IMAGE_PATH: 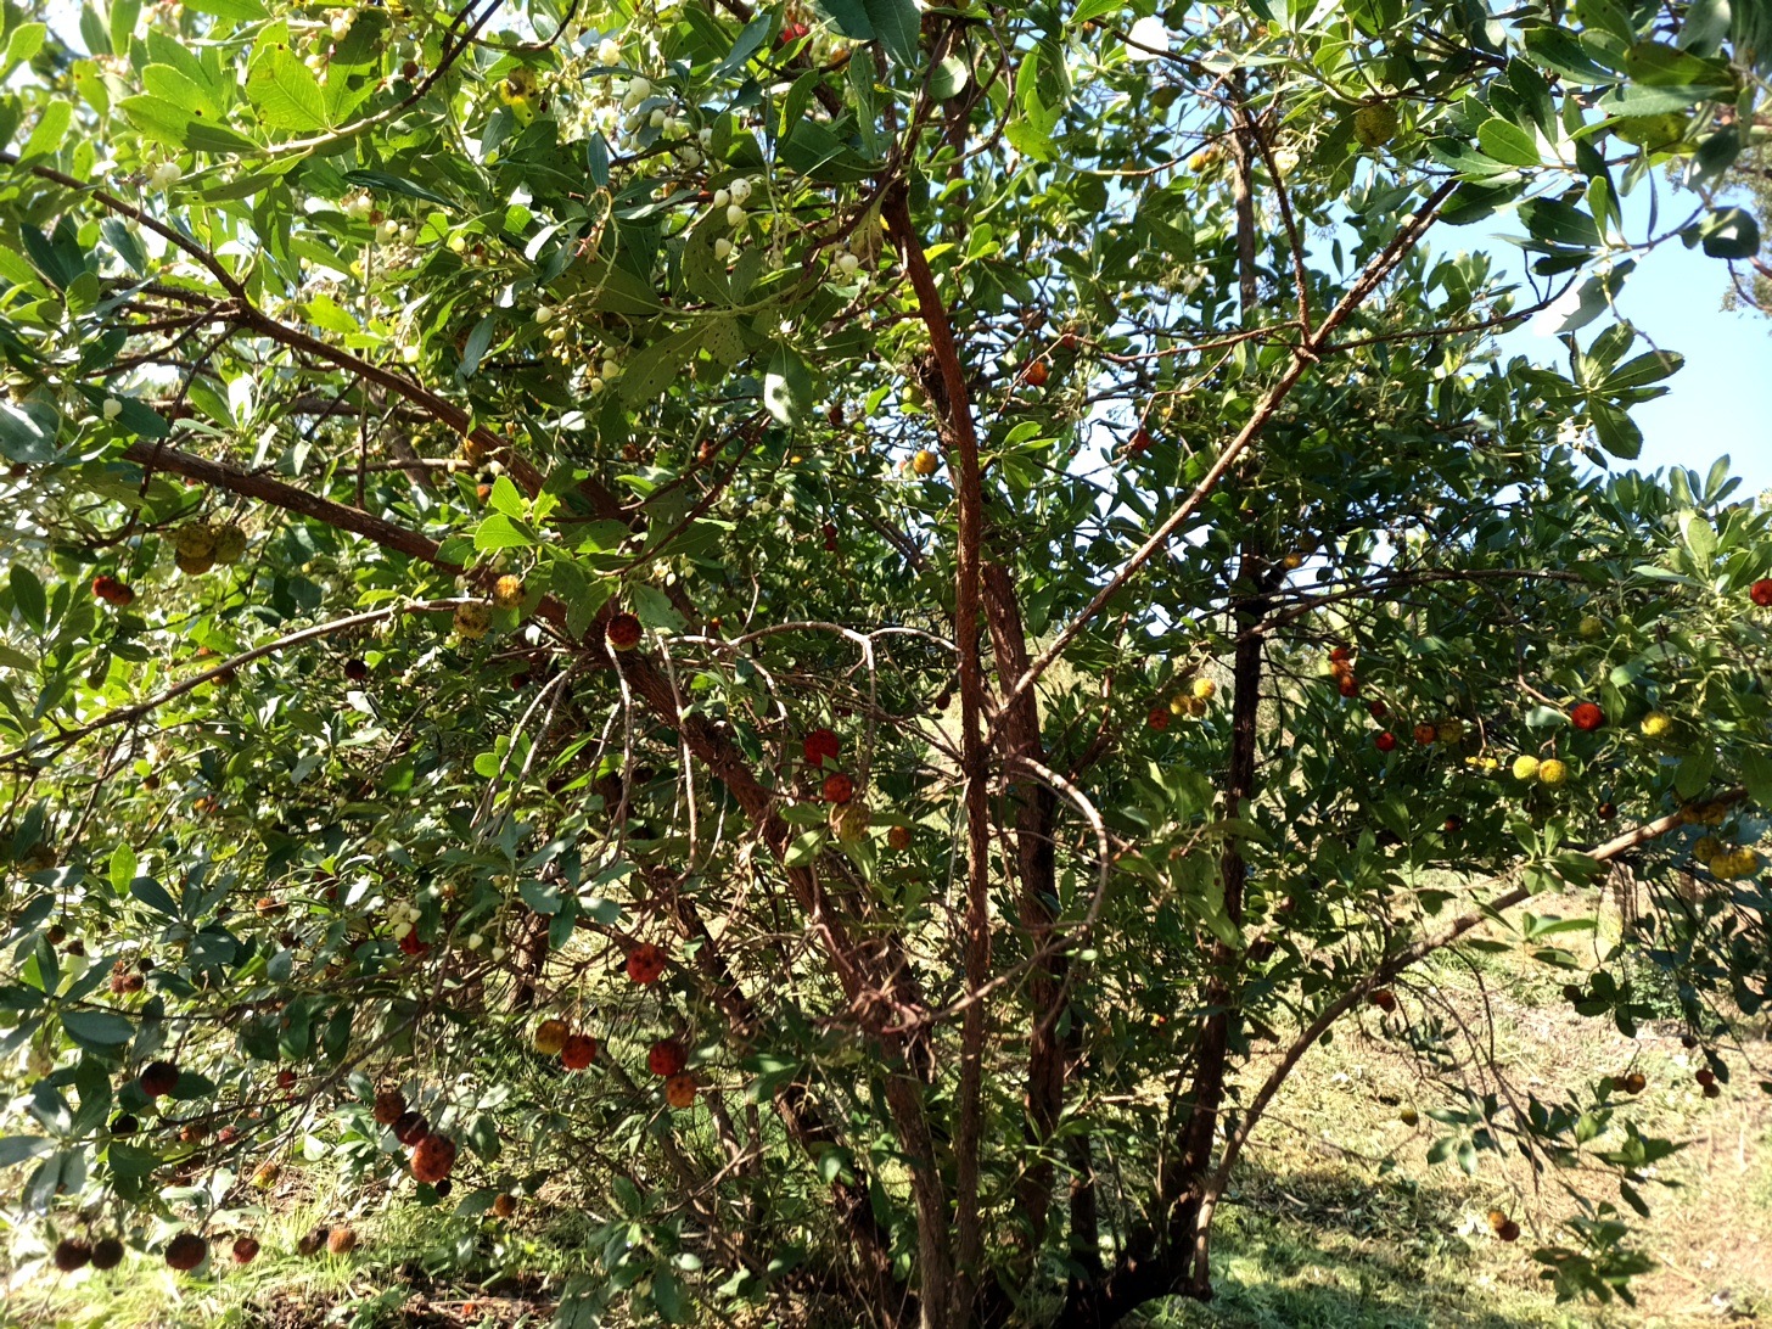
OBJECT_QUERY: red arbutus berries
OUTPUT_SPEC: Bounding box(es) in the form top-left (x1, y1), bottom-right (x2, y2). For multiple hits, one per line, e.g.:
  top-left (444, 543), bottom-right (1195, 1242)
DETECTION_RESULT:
top-left (824, 539), bottom-right (837, 550)
top-left (1146, 706), bottom-right (1170, 730)
top-left (91, 573), bottom-right (117, 597)
top-left (1381, 997), bottom-right (1395, 1011)
top-left (219, 1124), bottom-right (237, 1144)
top-left (1374, 731), bottom-right (1394, 750)
top-left (1327, 644), bottom-right (1350, 662)
top-left (233, 1237), bottom-right (259, 1262)
top-left (804, 730), bottom-right (839, 765)
top-left (626, 943), bottom-right (664, 987)
top-left (54, 1236), bottom-right (91, 1270)
top-left (277, 1069), bottom-right (296, 1088)
top-left (374, 1090), bottom-right (407, 1121)
top-left (111, 972), bottom-right (125, 993)
top-left (1126, 429), bottom-right (1151, 451)
top-left (562, 1035), bottom-right (596, 1071)
top-left (123, 976), bottom-right (143, 992)
top-left (1413, 722), bottom-right (1434, 745)
top-left (1573, 703), bottom-right (1602, 730)
top-left (1339, 674), bottom-right (1361, 697)
top-left (179, 1126), bottom-right (197, 1144)
top-left (1696, 1069), bottom-right (1714, 1084)
top-left (401, 925), bottom-right (429, 956)
top-left (824, 772), bottom-right (856, 803)
top-left (1022, 361), bottom-right (1047, 384)
top-left (646, 1039), bottom-right (684, 1073)
top-left (409, 1136), bottom-right (456, 1182)
top-left (113, 583), bottom-right (137, 605)
top-left (141, 1061), bottom-right (175, 1098)
top-left (47, 926), bottom-right (65, 943)
top-left (608, 612), bottom-right (642, 645)
top-left (395, 1112), bottom-right (428, 1144)
top-left (1750, 577), bottom-right (1772, 606)
top-left (1370, 700), bottom-right (1388, 716)
top-left (165, 1235), bottom-right (204, 1268)
top-left (1444, 814), bottom-right (1463, 831)
top-left (824, 525), bottom-right (838, 537)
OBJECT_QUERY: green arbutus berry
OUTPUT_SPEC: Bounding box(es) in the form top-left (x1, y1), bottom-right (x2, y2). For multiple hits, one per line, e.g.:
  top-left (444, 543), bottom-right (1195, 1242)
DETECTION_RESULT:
top-left (1577, 613), bottom-right (1603, 636)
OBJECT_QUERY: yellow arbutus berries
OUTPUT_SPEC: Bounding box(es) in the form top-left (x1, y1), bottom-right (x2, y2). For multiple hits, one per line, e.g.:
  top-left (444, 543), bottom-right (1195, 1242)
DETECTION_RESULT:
top-left (1513, 755), bottom-right (1541, 781)
top-left (454, 599), bottom-right (492, 637)
top-left (93, 1237), bottom-right (125, 1270)
top-left (1539, 758), bottom-right (1568, 788)
top-left (1284, 552), bottom-right (1301, 567)
top-left (1641, 708), bottom-right (1674, 739)
top-left (1437, 721), bottom-right (1464, 743)
top-left (209, 525), bottom-right (246, 565)
top-left (888, 825), bottom-right (913, 849)
top-left (494, 1192), bottom-right (516, 1215)
top-left (329, 1229), bottom-right (355, 1252)
top-left (1694, 834), bottom-right (1721, 862)
top-left (830, 796), bottom-right (871, 839)
top-left (1186, 694), bottom-right (1206, 715)
top-left (1168, 693), bottom-right (1190, 716)
top-left (536, 1020), bottom-right (570, 1051)
top-left (1708, 852), bottom-right (1736, 877)
top-left (1331, 660), bottom-right (1353, 677)
top-left (1628, 1074), bottom-right (1646, 1091)
top-left (174, 543), bottom-right (215, 574)
top-left (178, 520), bottom-right (213, 556)
top-left (1403, 1110), bottom-right (1419, 1126)
top-left (1682, 805), bottom-right (1700, 823)
top-left (493, 570), bottom-right (526, 608)
top-left (666, 1069), bottom-right (697, 1107)
top-left (912, 448), bottom-right (937, 475)
top-left (1732, 849), bottom-right (1759, 875)
top-left (1193, 678), bottom-right (1215, 700)
top-left (1486, 1208), bottom-right (1505, 1230)
top-left (257, 1159), bottom-right (277, 1180)
top-left (1700, 801), bottom-right (1726, 825)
